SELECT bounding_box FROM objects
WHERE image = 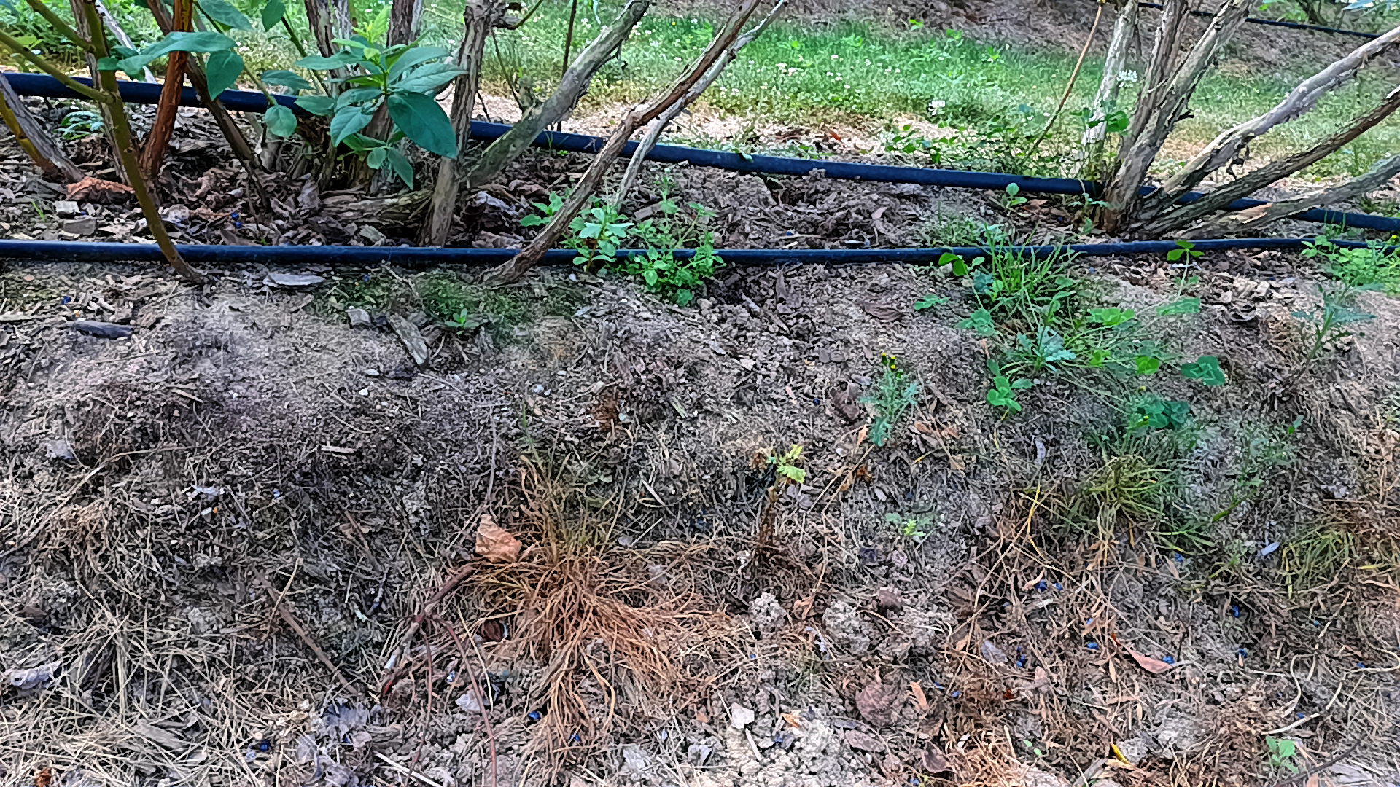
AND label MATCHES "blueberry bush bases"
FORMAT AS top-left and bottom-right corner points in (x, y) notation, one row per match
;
(3, 3), (667, 346)
(1049, 86), (1346, 294)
